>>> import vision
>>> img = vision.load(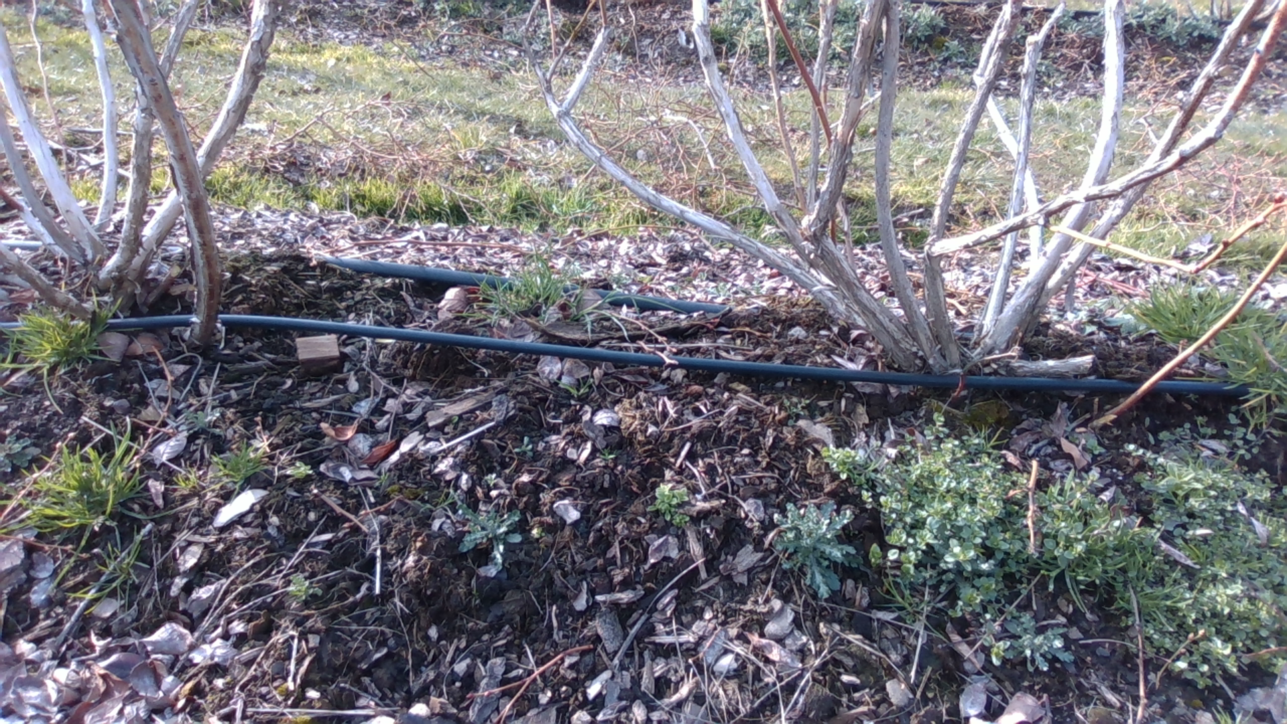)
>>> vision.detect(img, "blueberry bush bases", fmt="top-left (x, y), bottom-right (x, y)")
top-left (0, 69), bottom-right (275, 379)
top-left (701, 115), bottom-right (1174, 414)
